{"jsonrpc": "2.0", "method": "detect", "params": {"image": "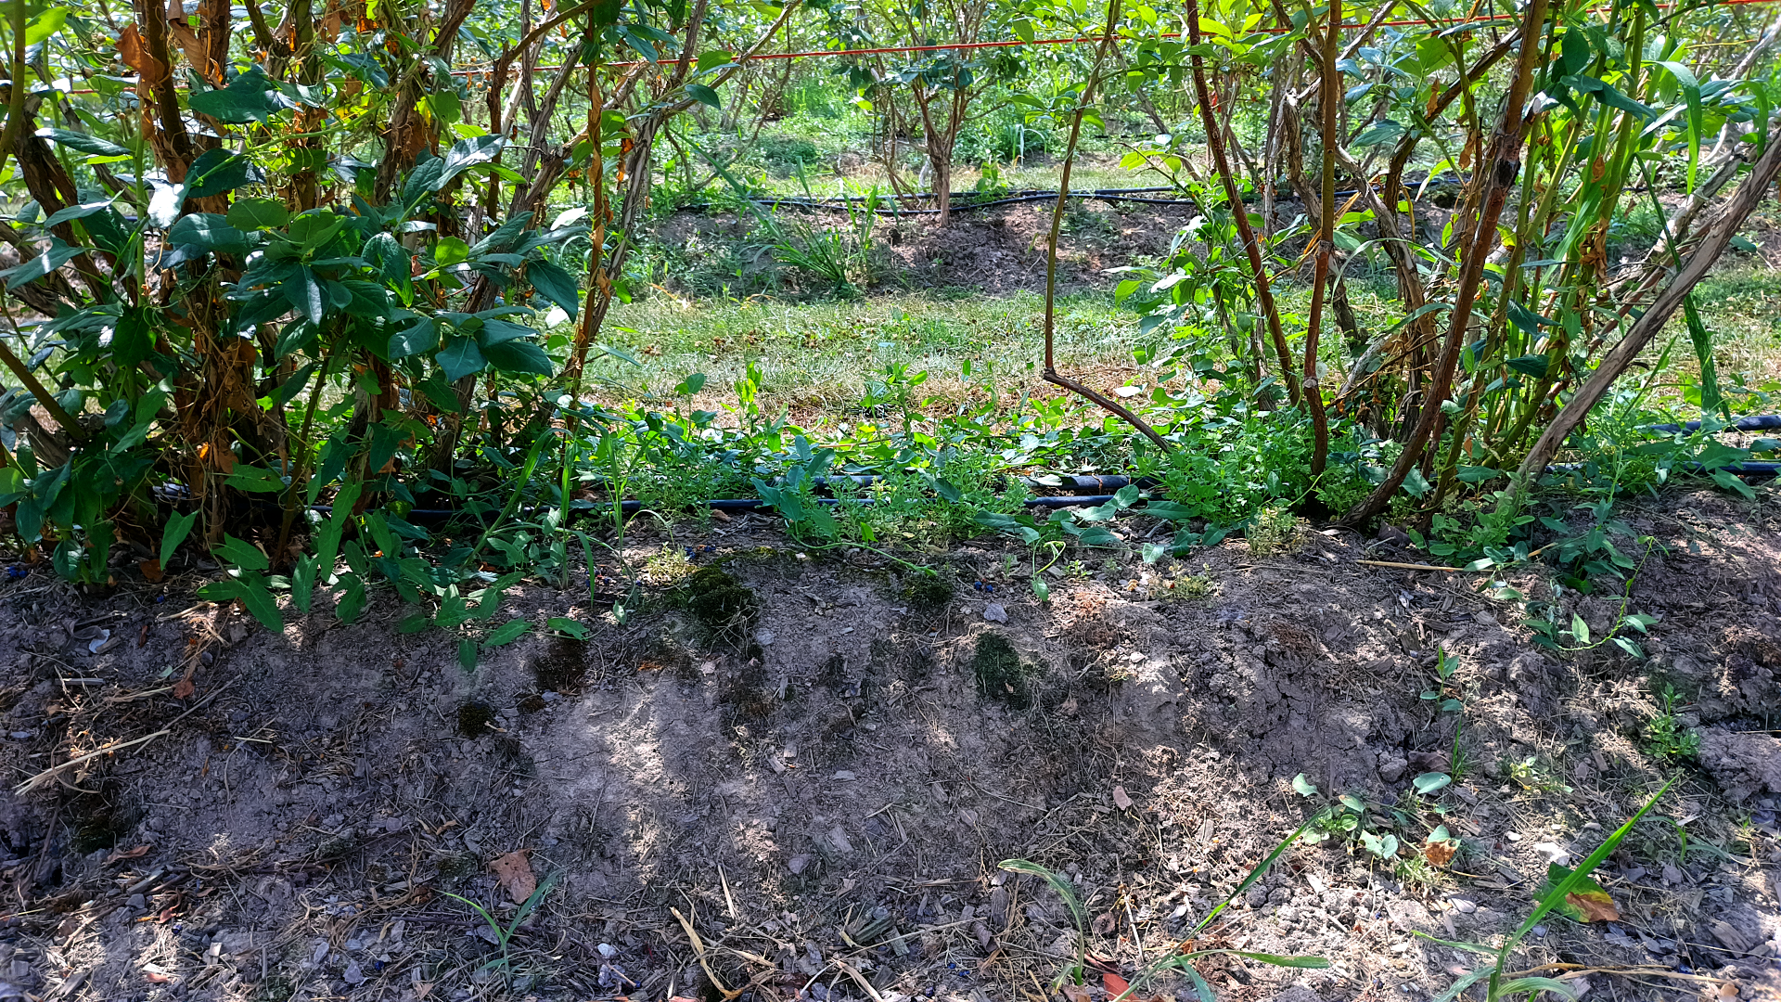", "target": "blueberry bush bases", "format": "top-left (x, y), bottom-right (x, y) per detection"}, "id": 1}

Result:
top-left (1081, 321), bottom-right (1694, 596)
top-left (866, 129), bottom-right (998, 238)
top-left (136, 278), bottom-right (649, 630)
